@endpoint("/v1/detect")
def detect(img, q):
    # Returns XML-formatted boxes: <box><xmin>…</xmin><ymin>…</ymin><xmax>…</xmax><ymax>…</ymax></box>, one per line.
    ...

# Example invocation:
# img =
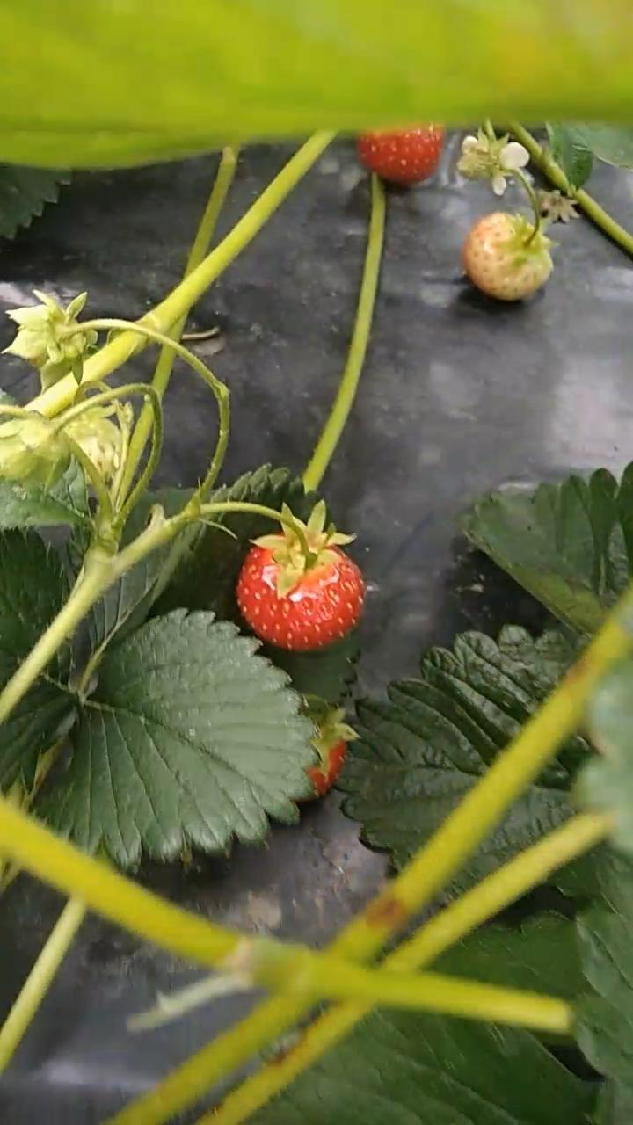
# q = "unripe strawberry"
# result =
<box><xmin>465</xmin><ymin>210</ymin><xmax>560</xmax><ymax>300</ymax></box>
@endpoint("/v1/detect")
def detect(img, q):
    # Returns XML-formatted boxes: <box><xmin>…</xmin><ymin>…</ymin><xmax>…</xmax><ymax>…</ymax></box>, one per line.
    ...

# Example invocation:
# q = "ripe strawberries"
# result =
<box><xmin>362</xmin><ymin>128</ymin><xmax>448</xmax><ymax>191</ymax></box>
<box><xmin>210</xmin><ymin>514</ymin><xmax>387</xmax><ymax>650</ymax></box>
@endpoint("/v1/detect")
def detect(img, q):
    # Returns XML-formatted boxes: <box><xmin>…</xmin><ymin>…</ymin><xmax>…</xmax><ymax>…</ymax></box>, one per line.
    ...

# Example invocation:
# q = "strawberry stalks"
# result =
<box><xmin>262</xmin><ymin>506</ymin><xmax>318</xmax><ymax>574</ymax></box>
<box><xmin>519</xmin><ymin>190</ymin><xmax>549</xmax><ymax>257</ymax></box>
